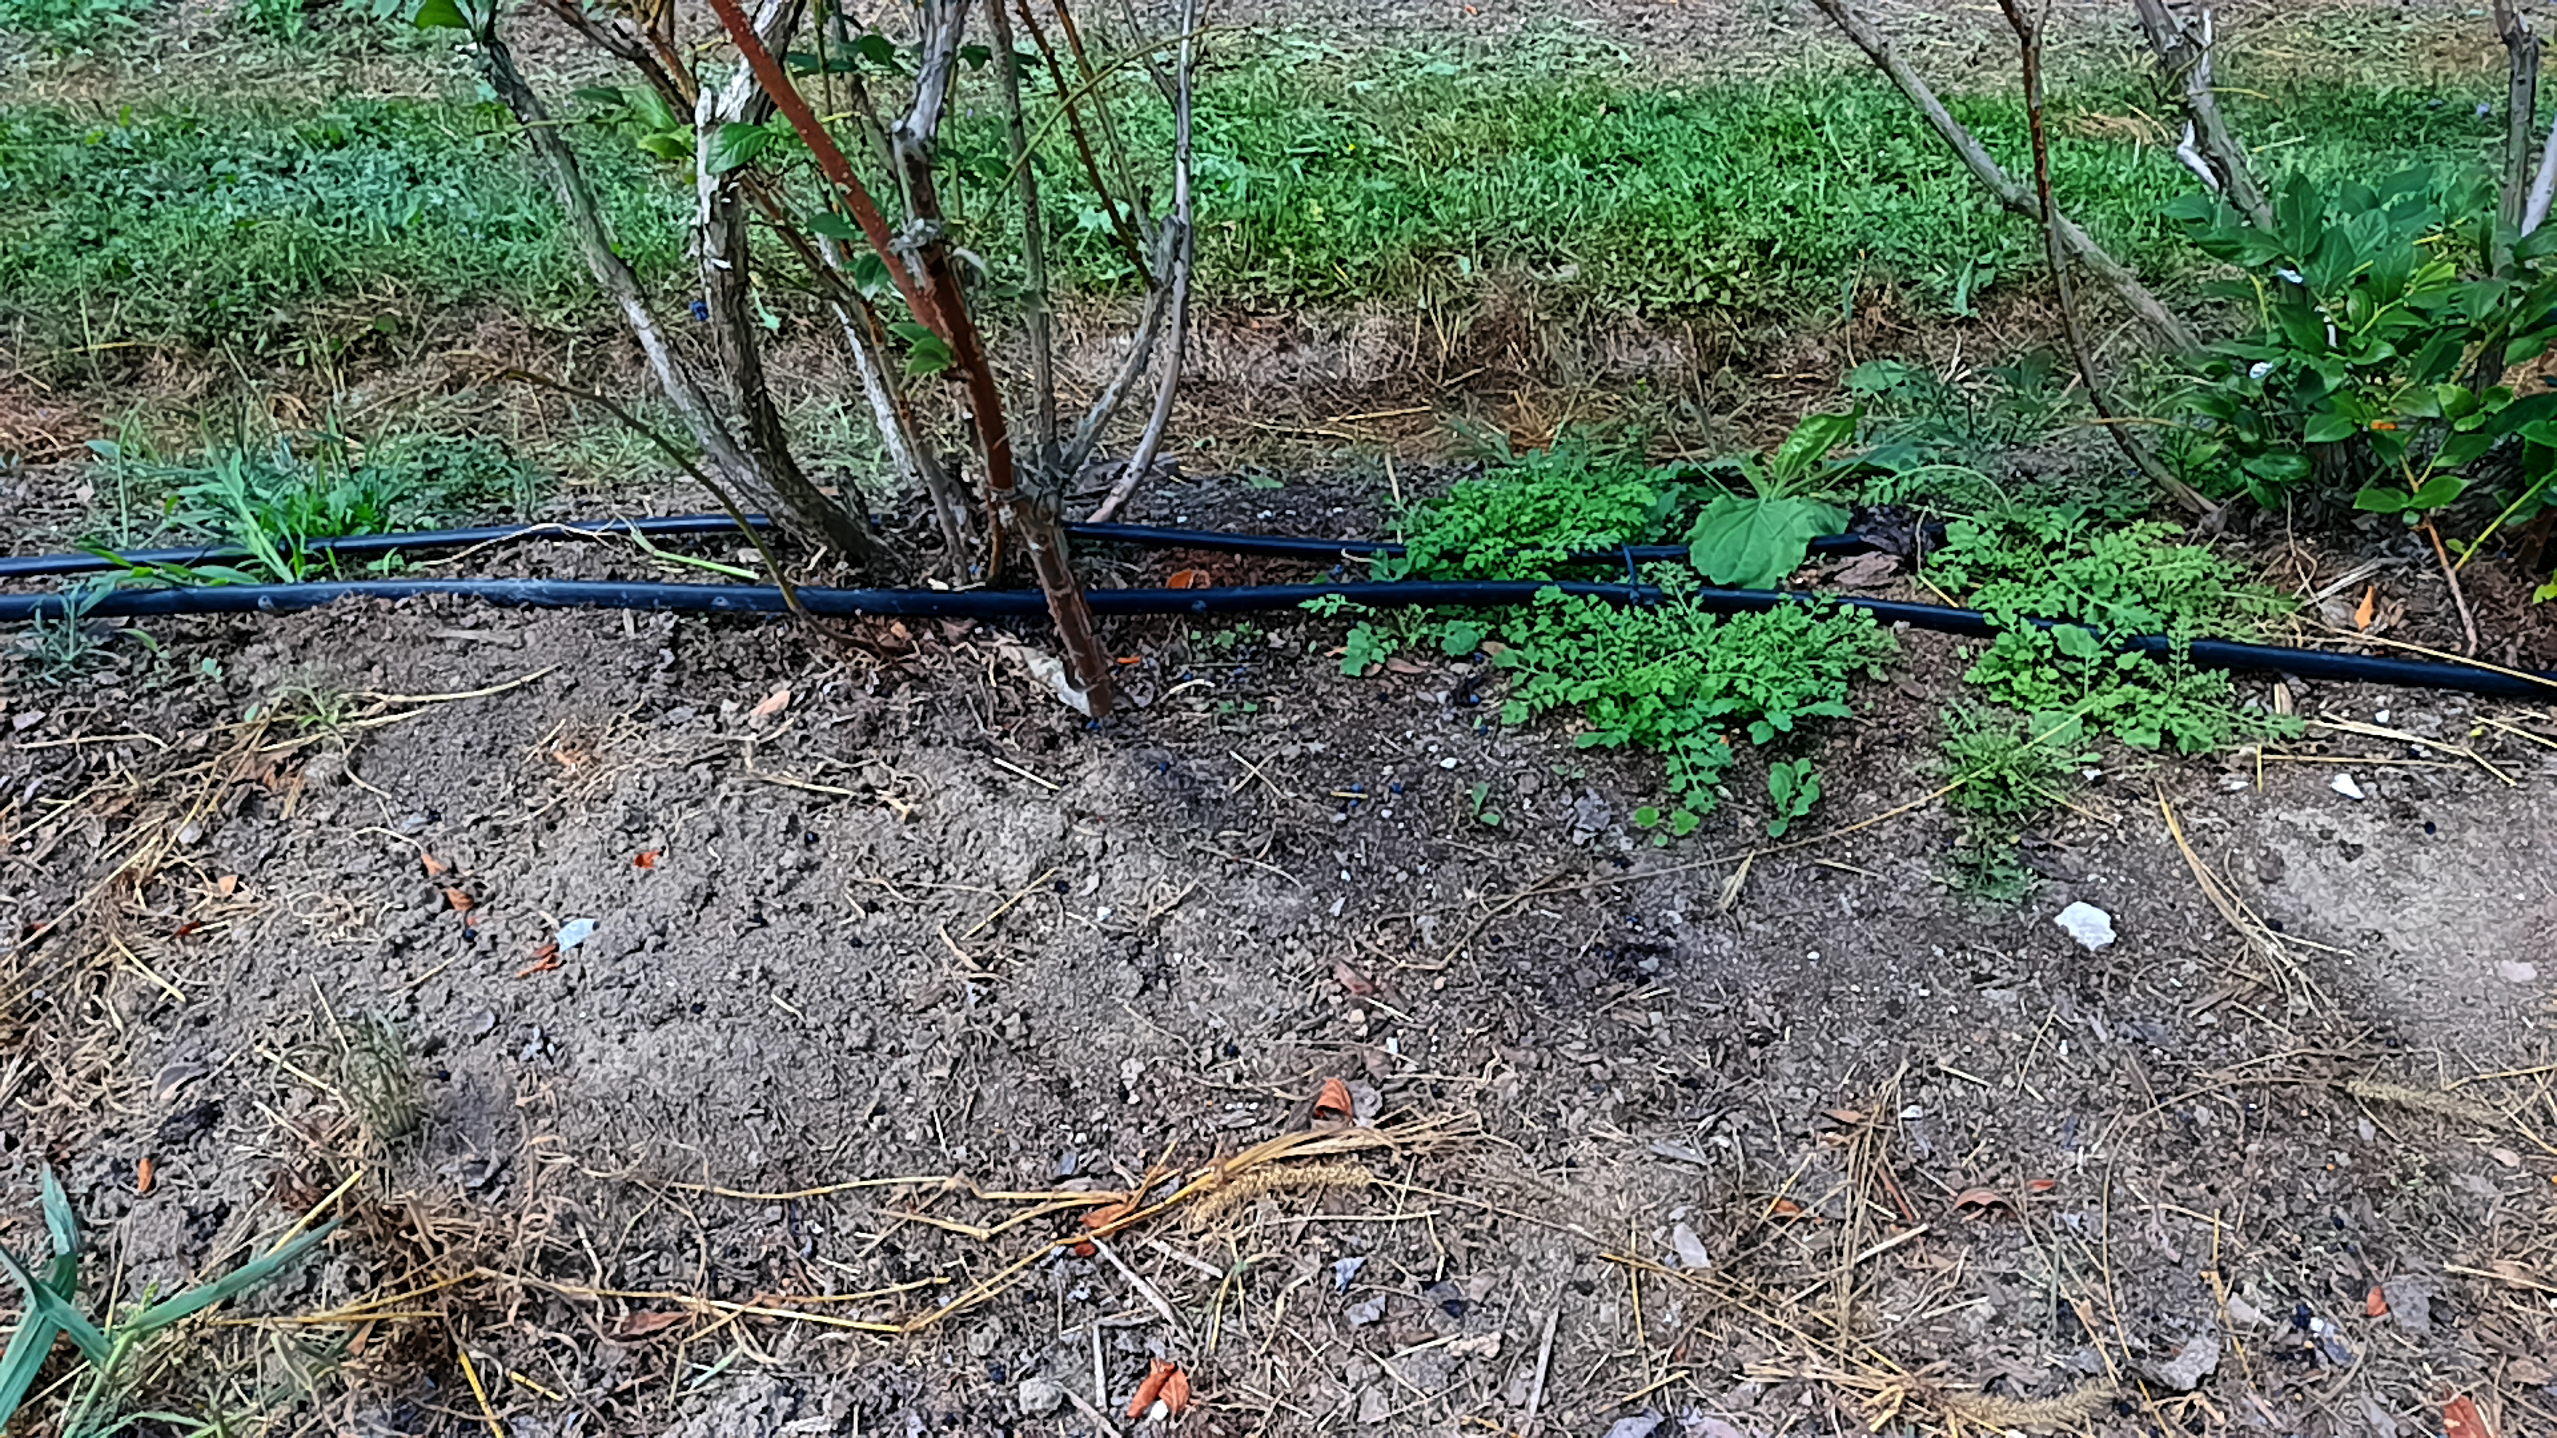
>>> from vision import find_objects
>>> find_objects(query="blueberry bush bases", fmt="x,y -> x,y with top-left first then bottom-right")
579,286 -> 1232,752
2006,142 -> 2552,718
